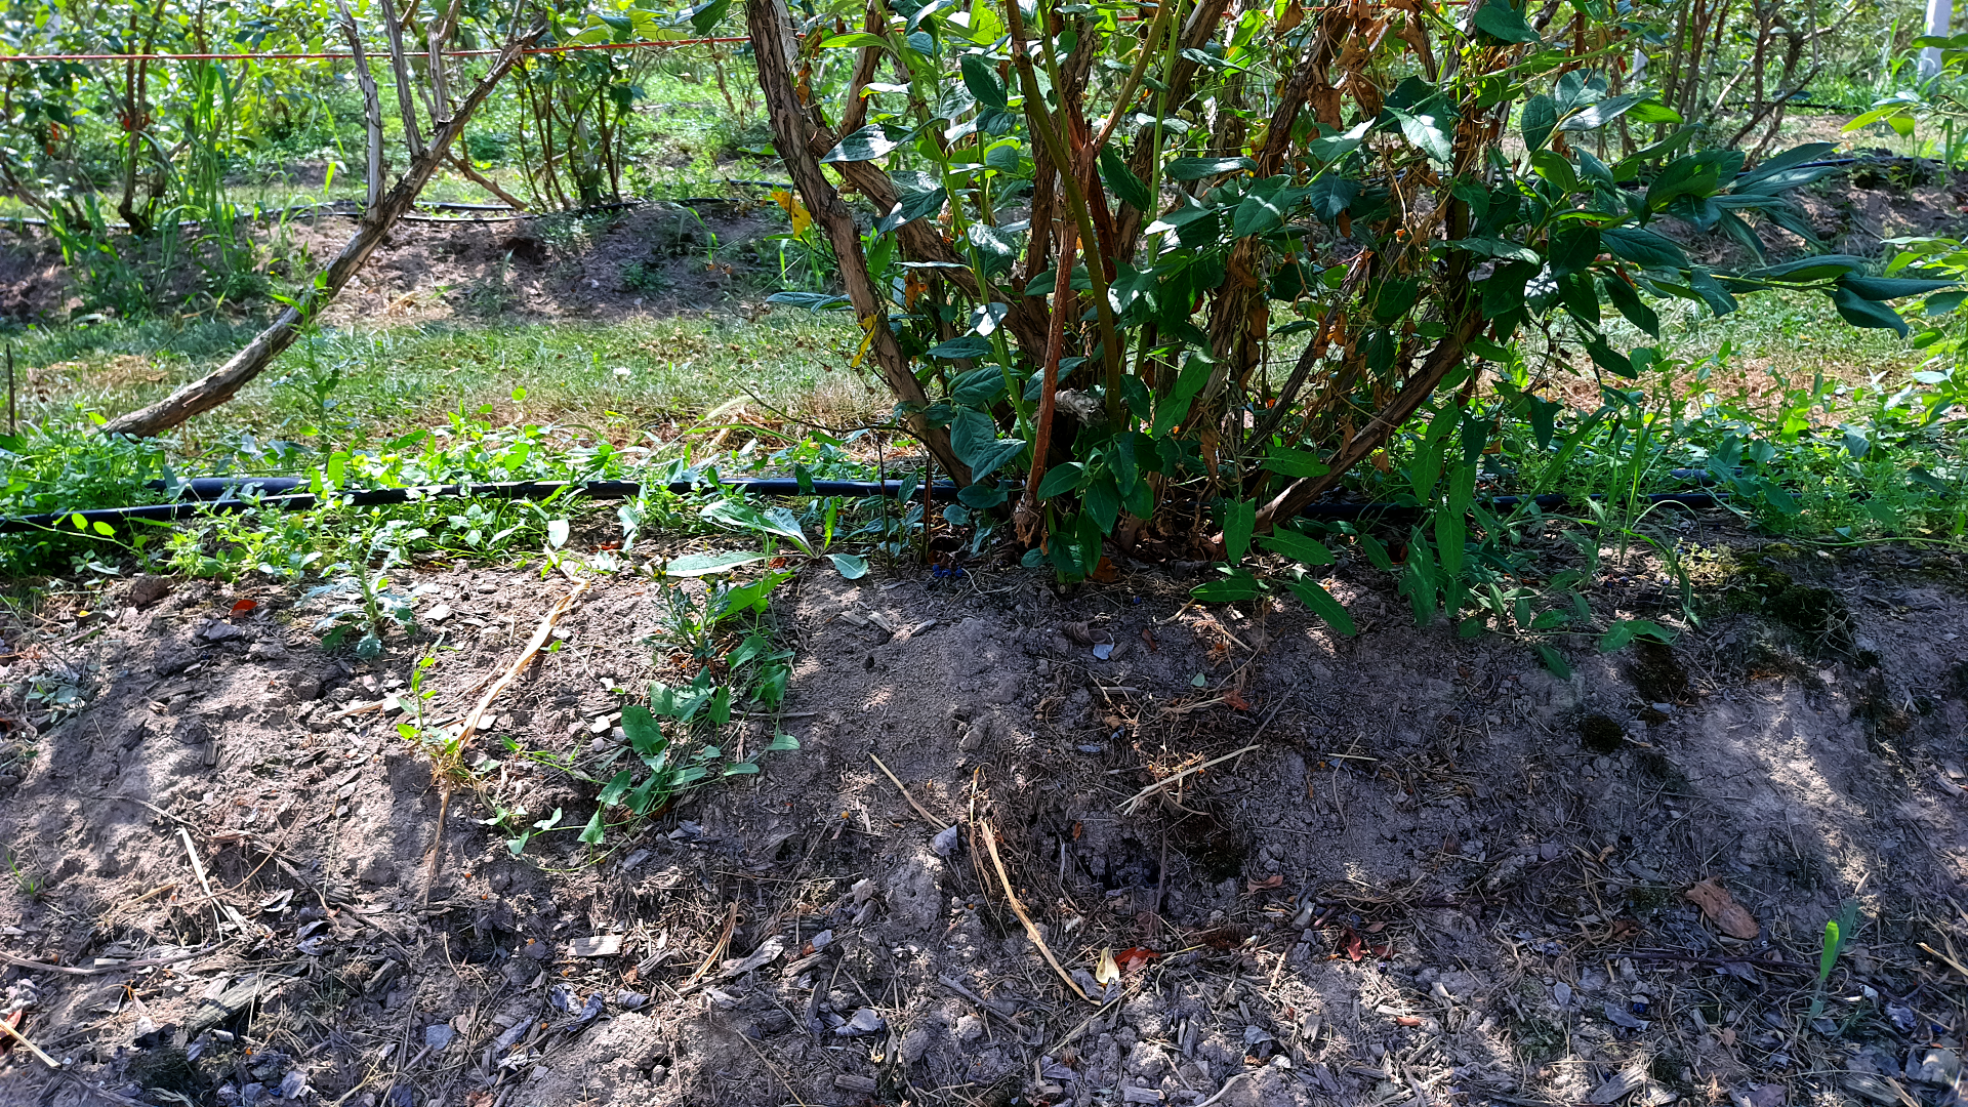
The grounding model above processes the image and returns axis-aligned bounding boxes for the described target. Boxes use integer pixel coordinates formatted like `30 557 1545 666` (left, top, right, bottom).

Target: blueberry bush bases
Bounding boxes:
478 128 656 260
797 233 1503 667
12 141 223 282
